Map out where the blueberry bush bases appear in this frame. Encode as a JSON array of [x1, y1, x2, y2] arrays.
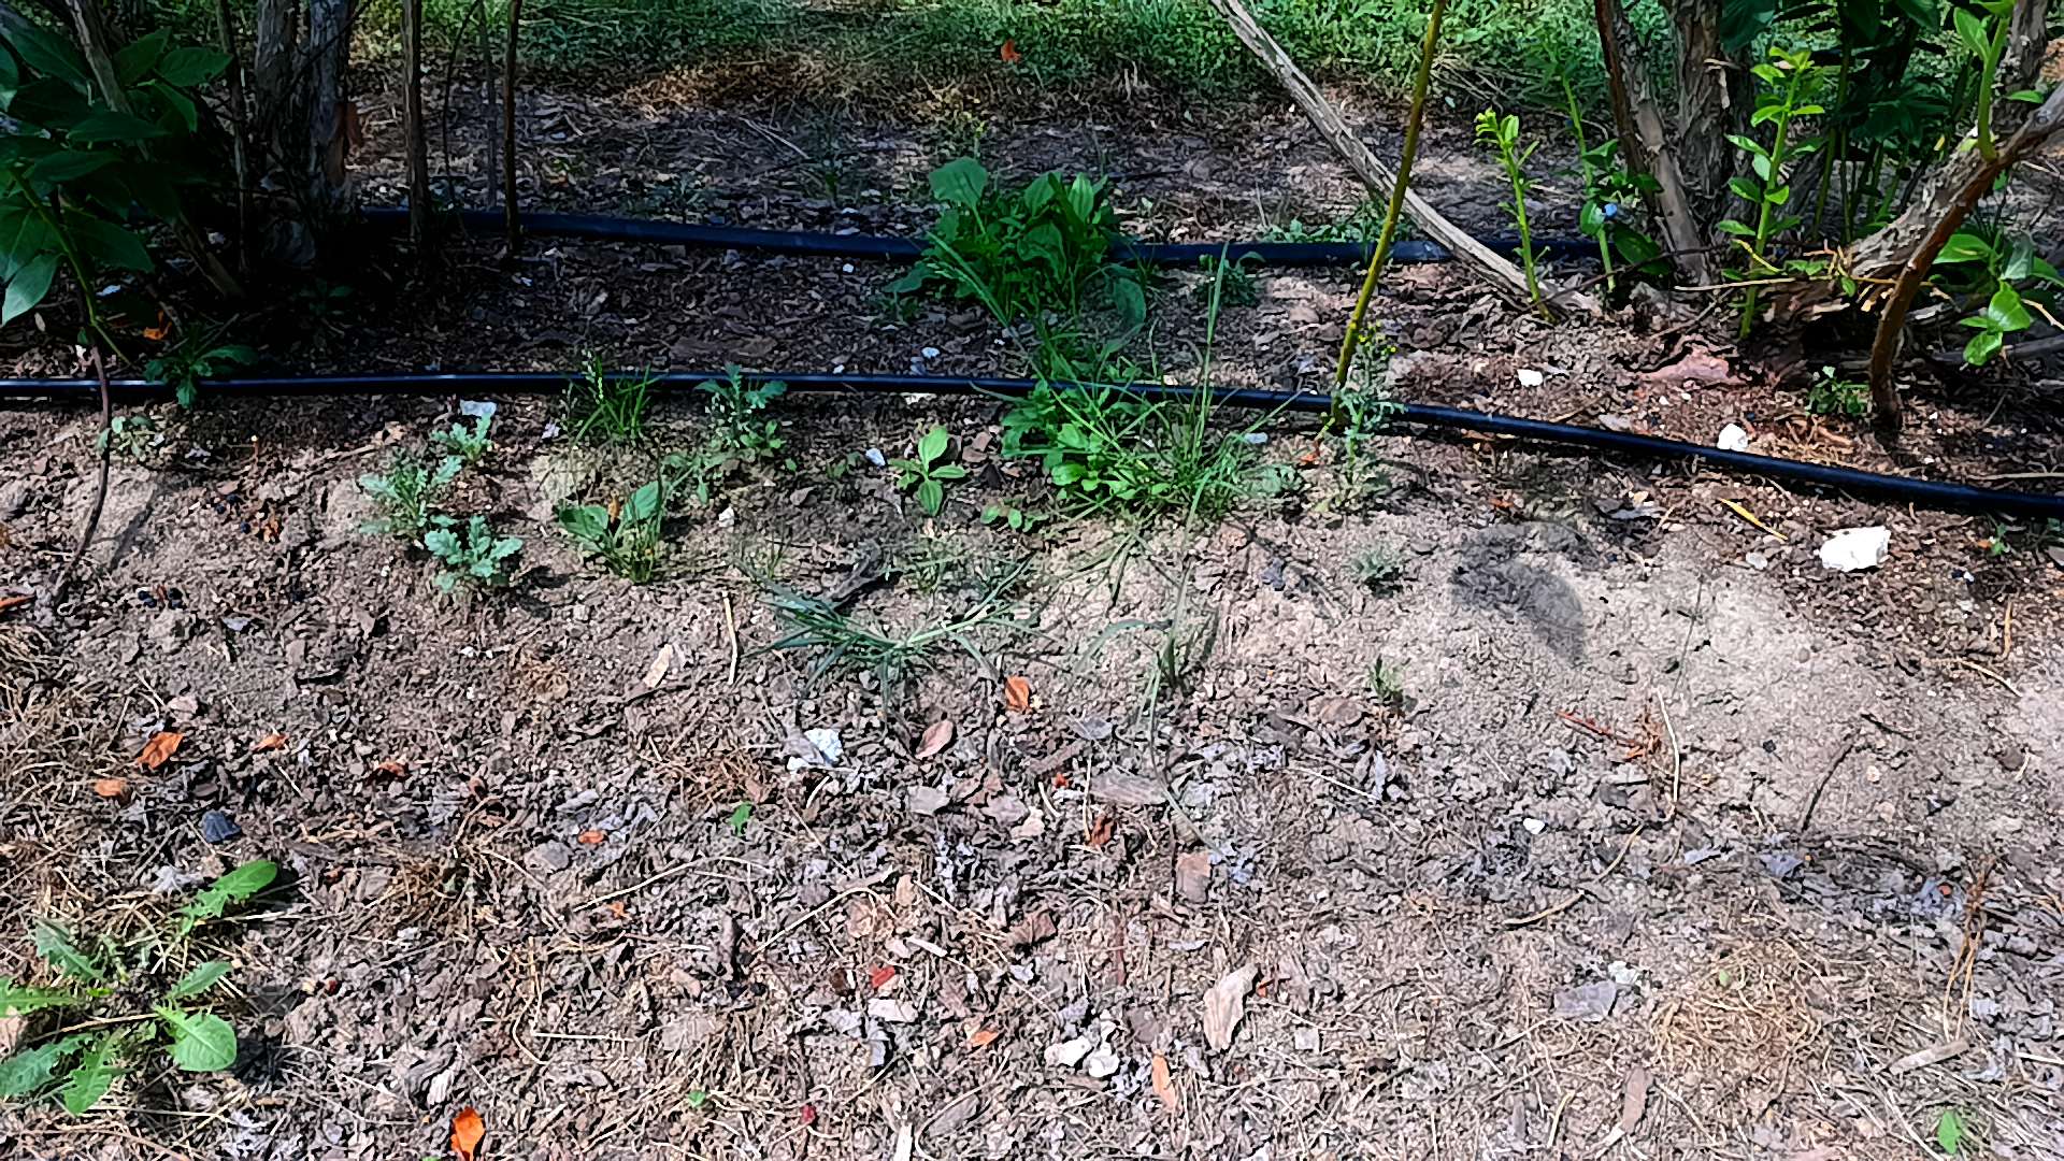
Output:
[[1591, 131, 2037, 472], [19, 40, 481, 424]]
